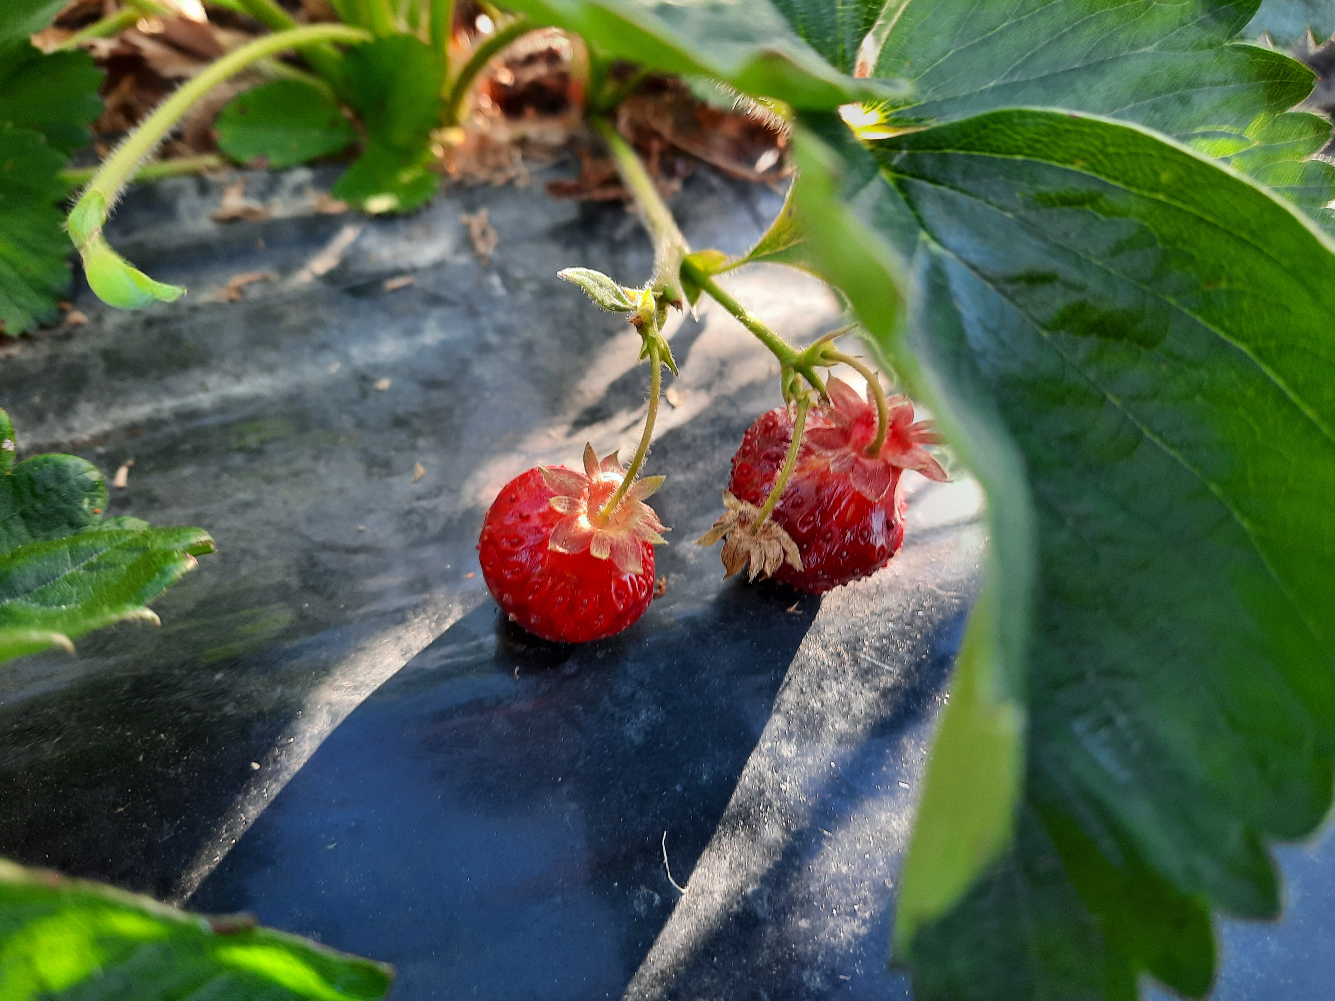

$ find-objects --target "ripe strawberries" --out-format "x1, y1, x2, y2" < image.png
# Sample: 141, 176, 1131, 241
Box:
720, 423, 917, 588
485, 475, 659, 636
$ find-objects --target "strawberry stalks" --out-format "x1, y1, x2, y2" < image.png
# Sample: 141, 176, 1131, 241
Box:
585, 330, 666, 536
739, 301, 862, 437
